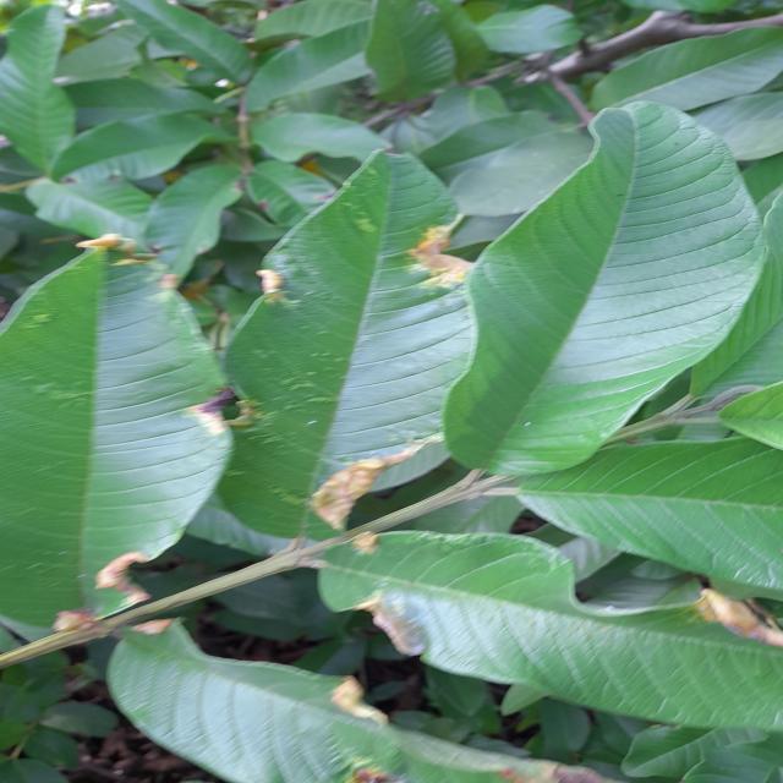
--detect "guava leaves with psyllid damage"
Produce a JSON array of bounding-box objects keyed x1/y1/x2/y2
[
  {"x1": 1, "y1": 232, "x2": 245, "y2": 658},
  {"x1": 206, "y1": 132, "x2": 484, "y2": 548}
]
